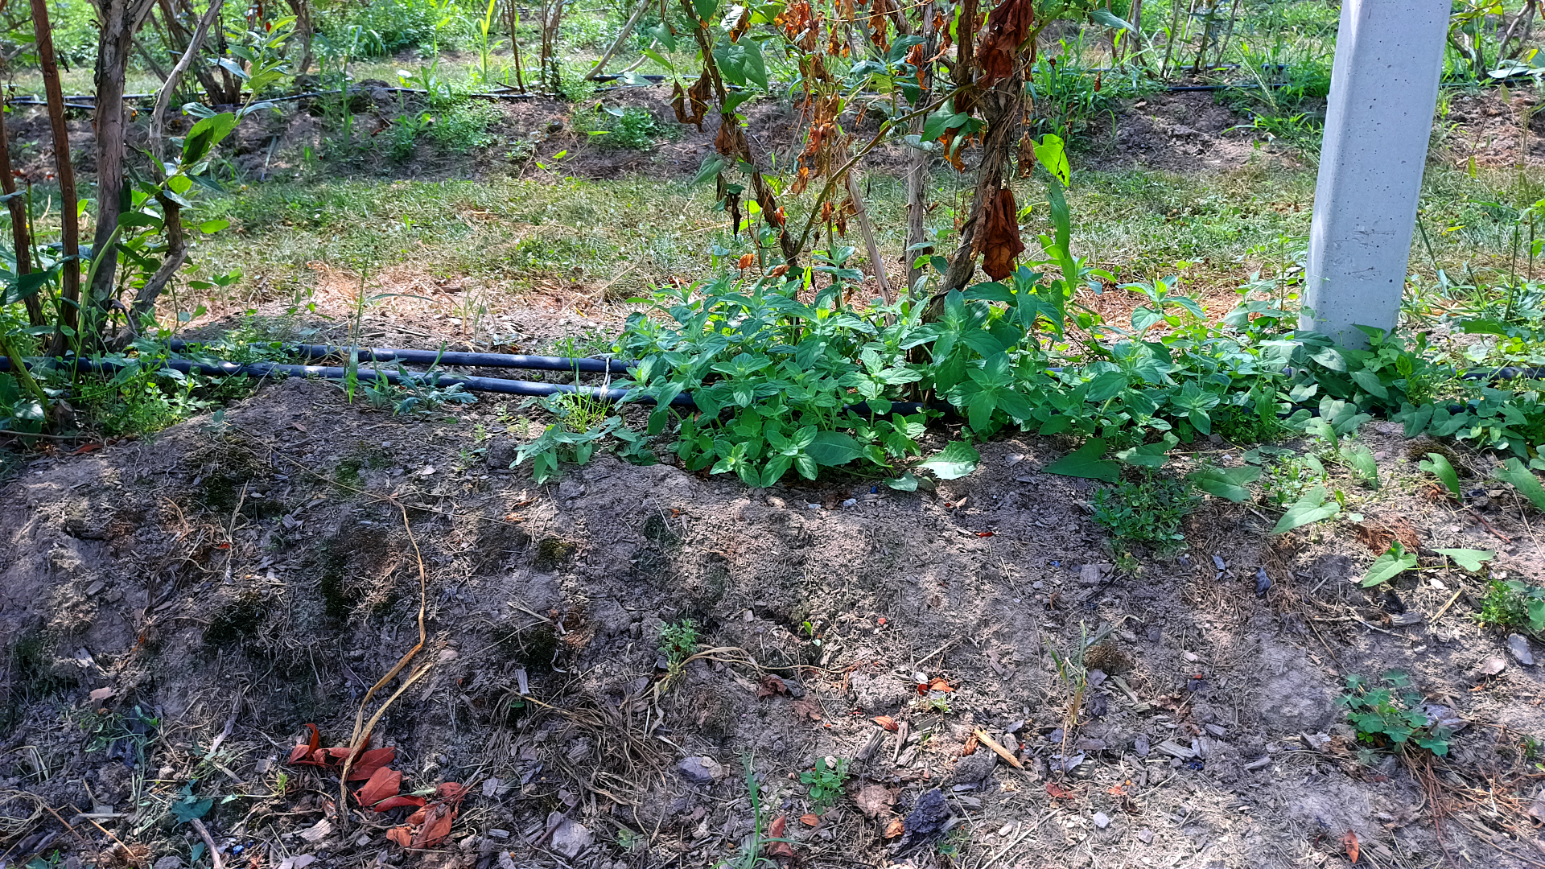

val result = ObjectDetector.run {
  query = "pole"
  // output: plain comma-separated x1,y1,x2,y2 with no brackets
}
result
1294,6,1458,385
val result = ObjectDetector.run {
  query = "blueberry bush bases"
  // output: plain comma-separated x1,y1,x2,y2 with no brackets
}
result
489,38,603,124
1459,31,1533,89
0,216,220,474
1112,41,1240,101
718,208,1049,500
179,46,312,134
